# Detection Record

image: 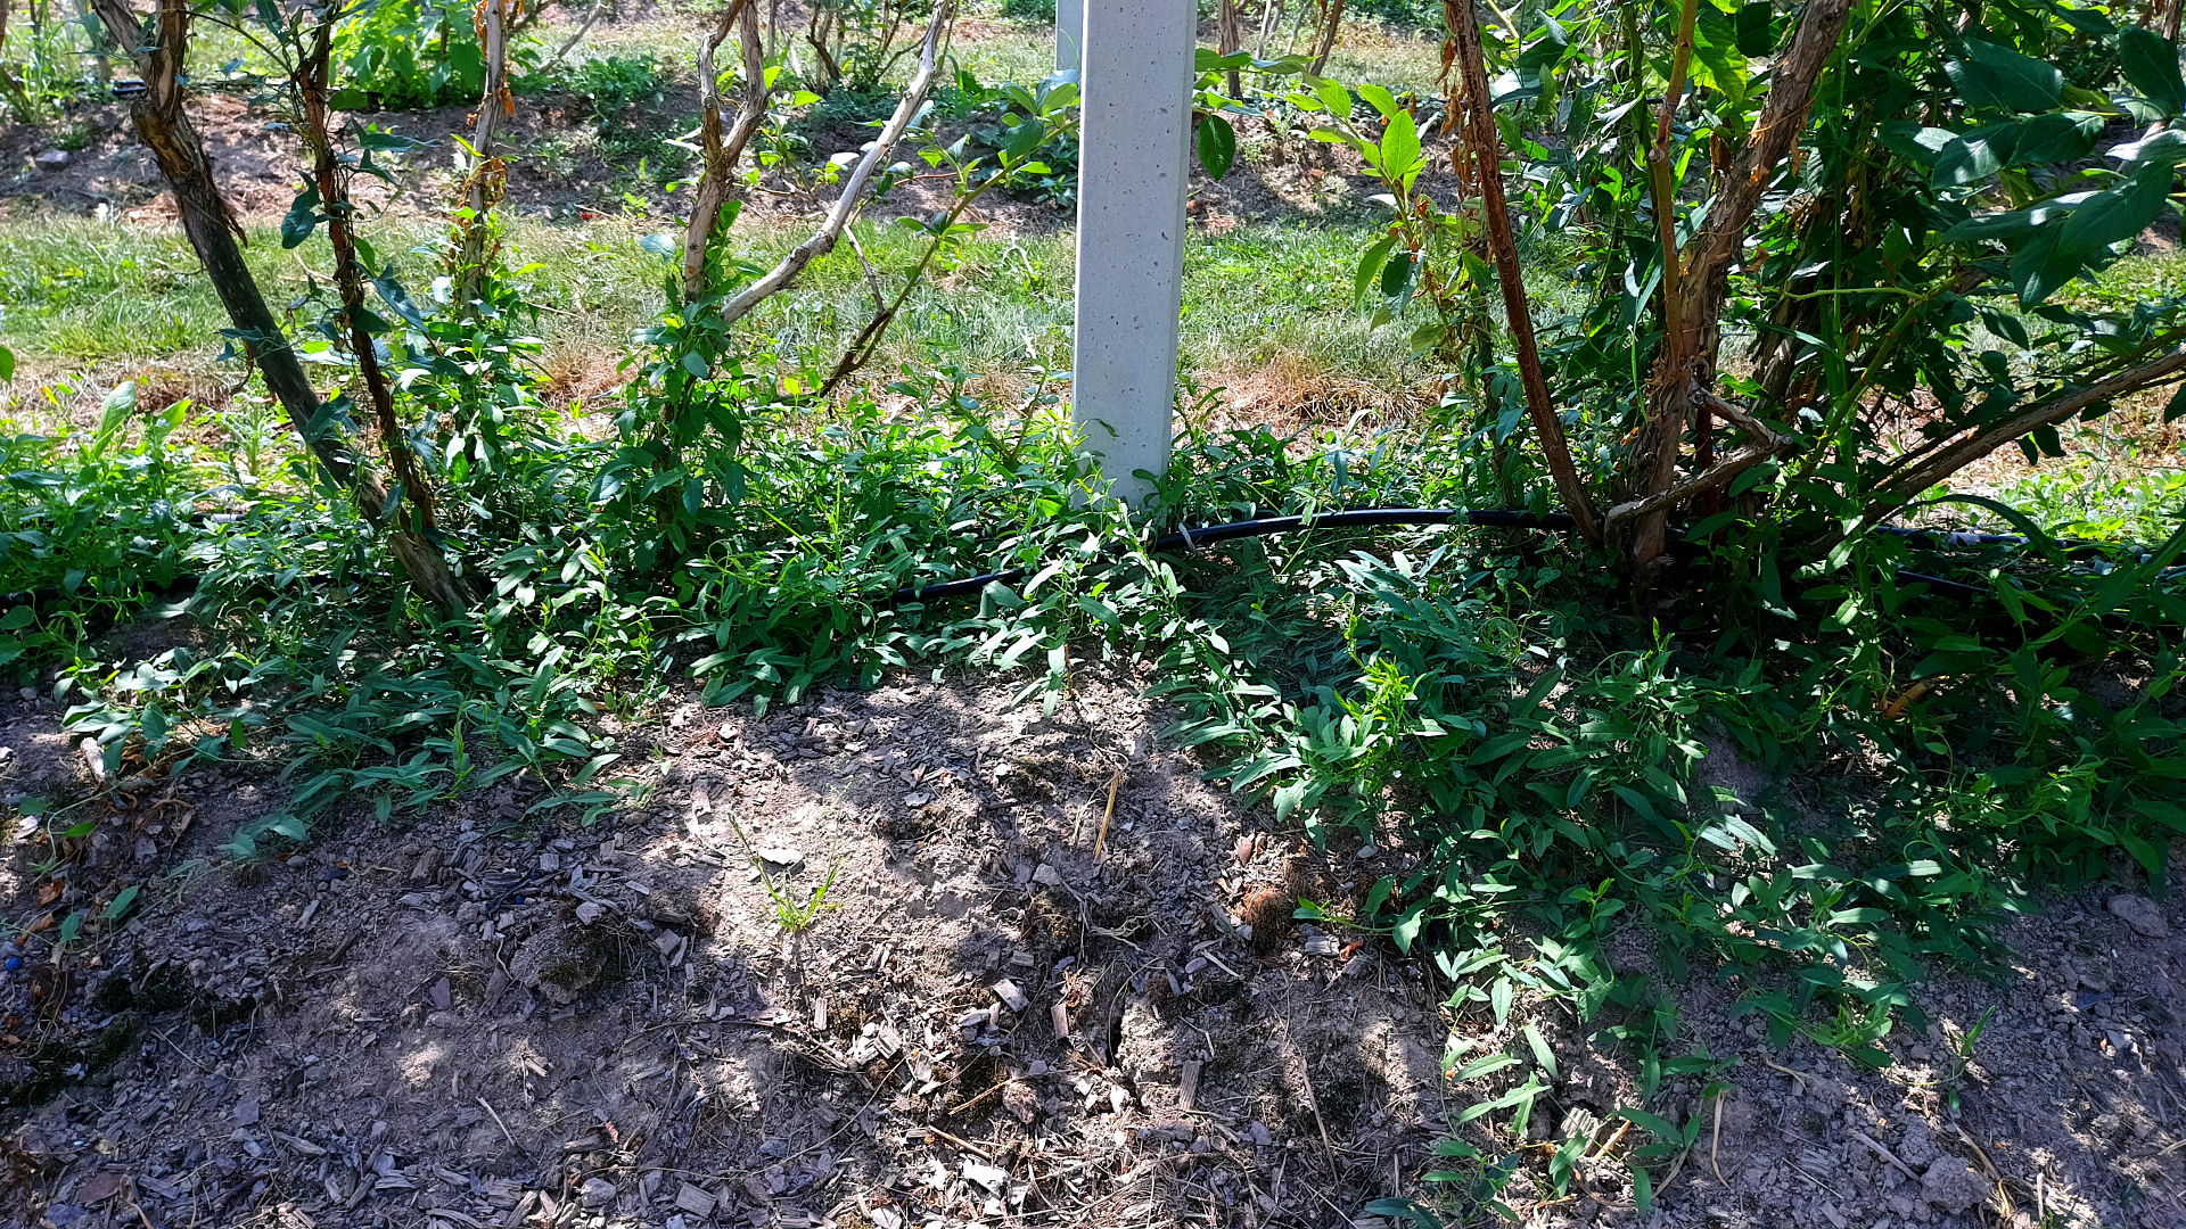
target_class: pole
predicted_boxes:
[1037,49,1216,496]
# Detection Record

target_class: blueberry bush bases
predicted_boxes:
[806,39,891,109]
[1466,323,2000,745]
[221,348,778,740]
